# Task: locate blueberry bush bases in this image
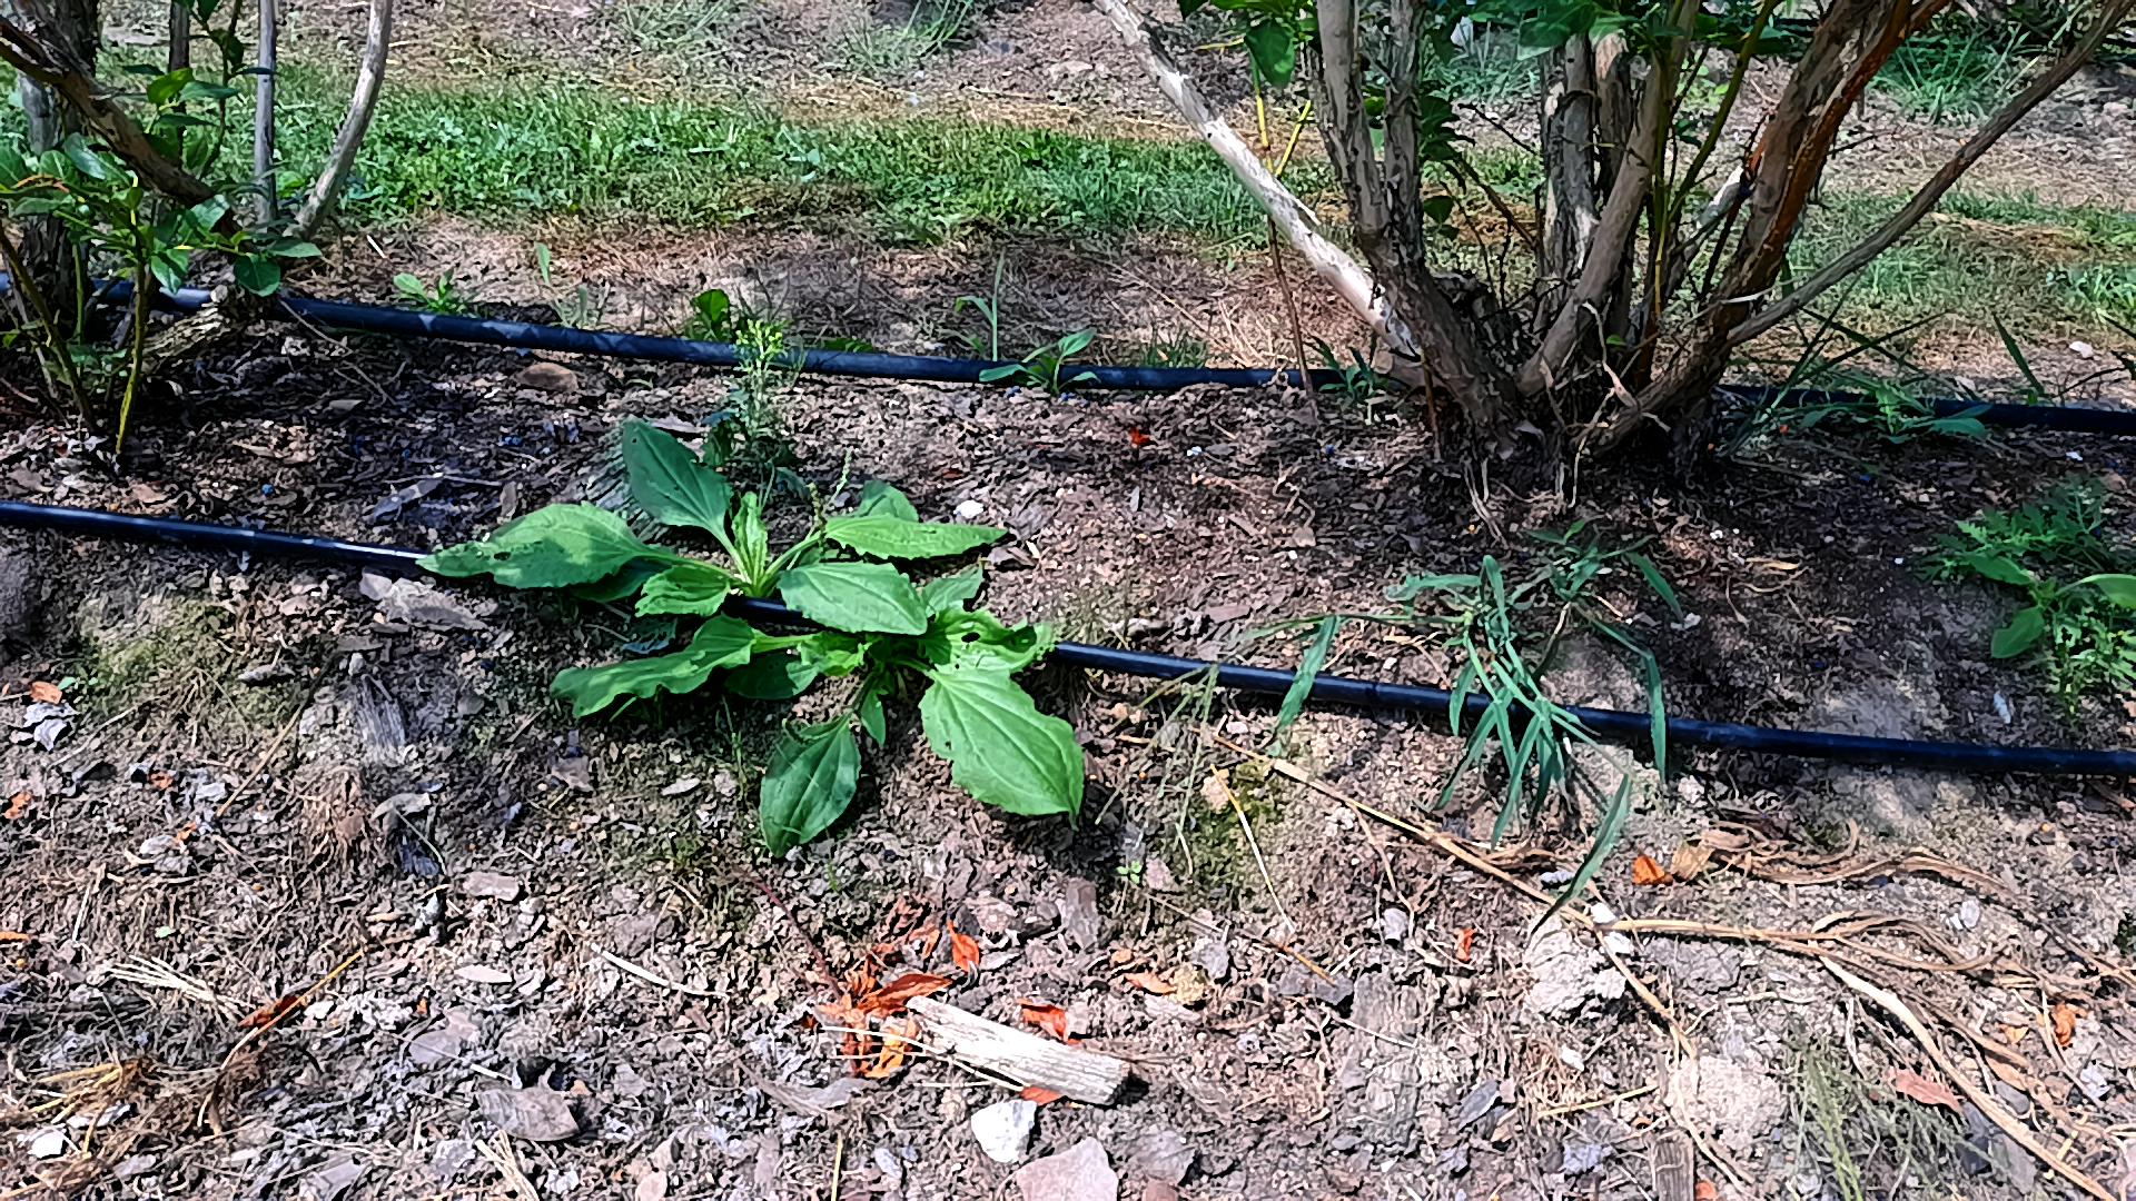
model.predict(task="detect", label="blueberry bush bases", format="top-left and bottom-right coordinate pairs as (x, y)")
top-left (1249, 106), bottom-right (1891, 570)
top-left (1, 127), bottom-right (347, 506)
